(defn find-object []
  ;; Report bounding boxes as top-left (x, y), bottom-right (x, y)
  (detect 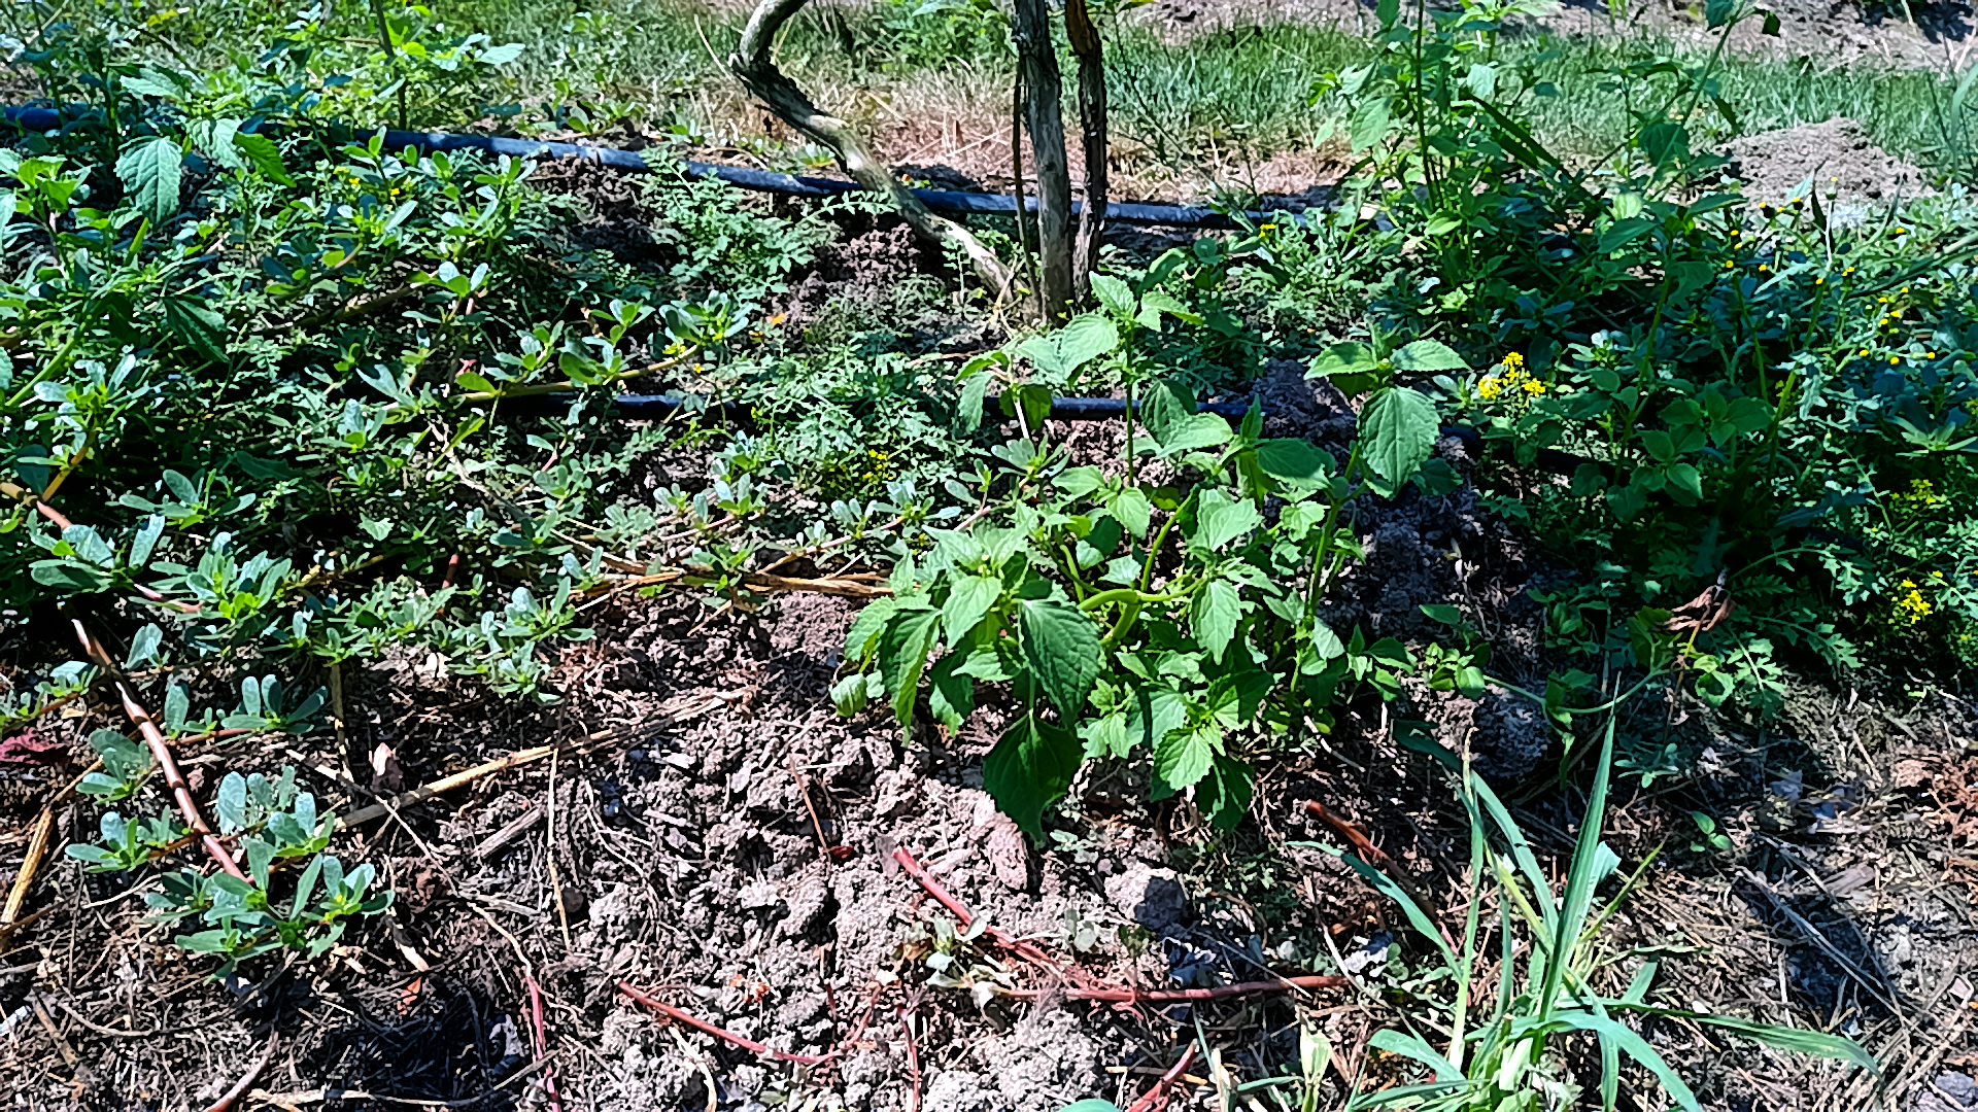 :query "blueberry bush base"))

top-left (770, 112), bottom-right (1187, 359)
